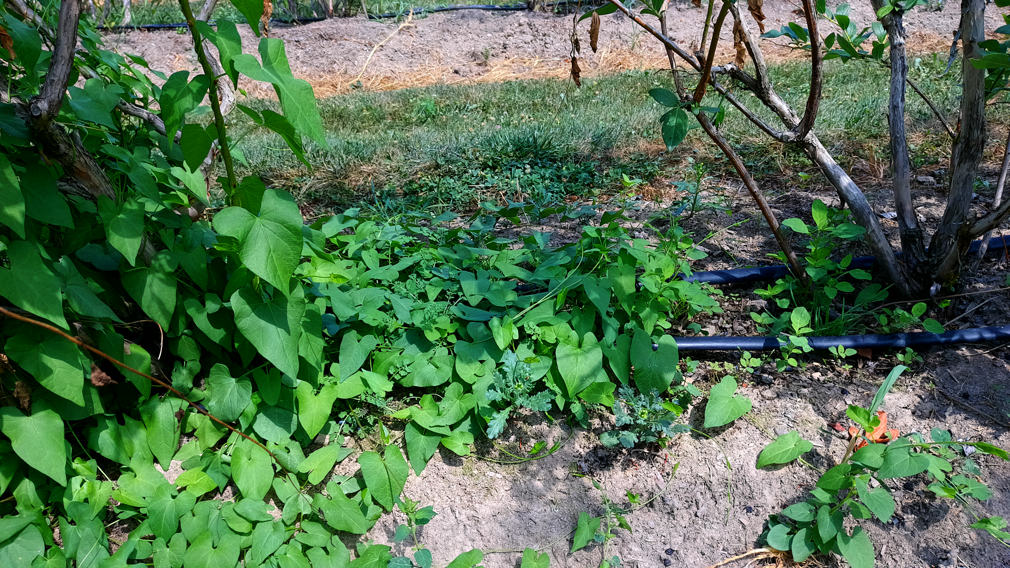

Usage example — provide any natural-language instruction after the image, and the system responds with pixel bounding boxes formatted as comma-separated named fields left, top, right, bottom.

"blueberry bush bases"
left=743, top=135, right=1010, bottom=362
left=6, top=68, right=252, bottom=350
